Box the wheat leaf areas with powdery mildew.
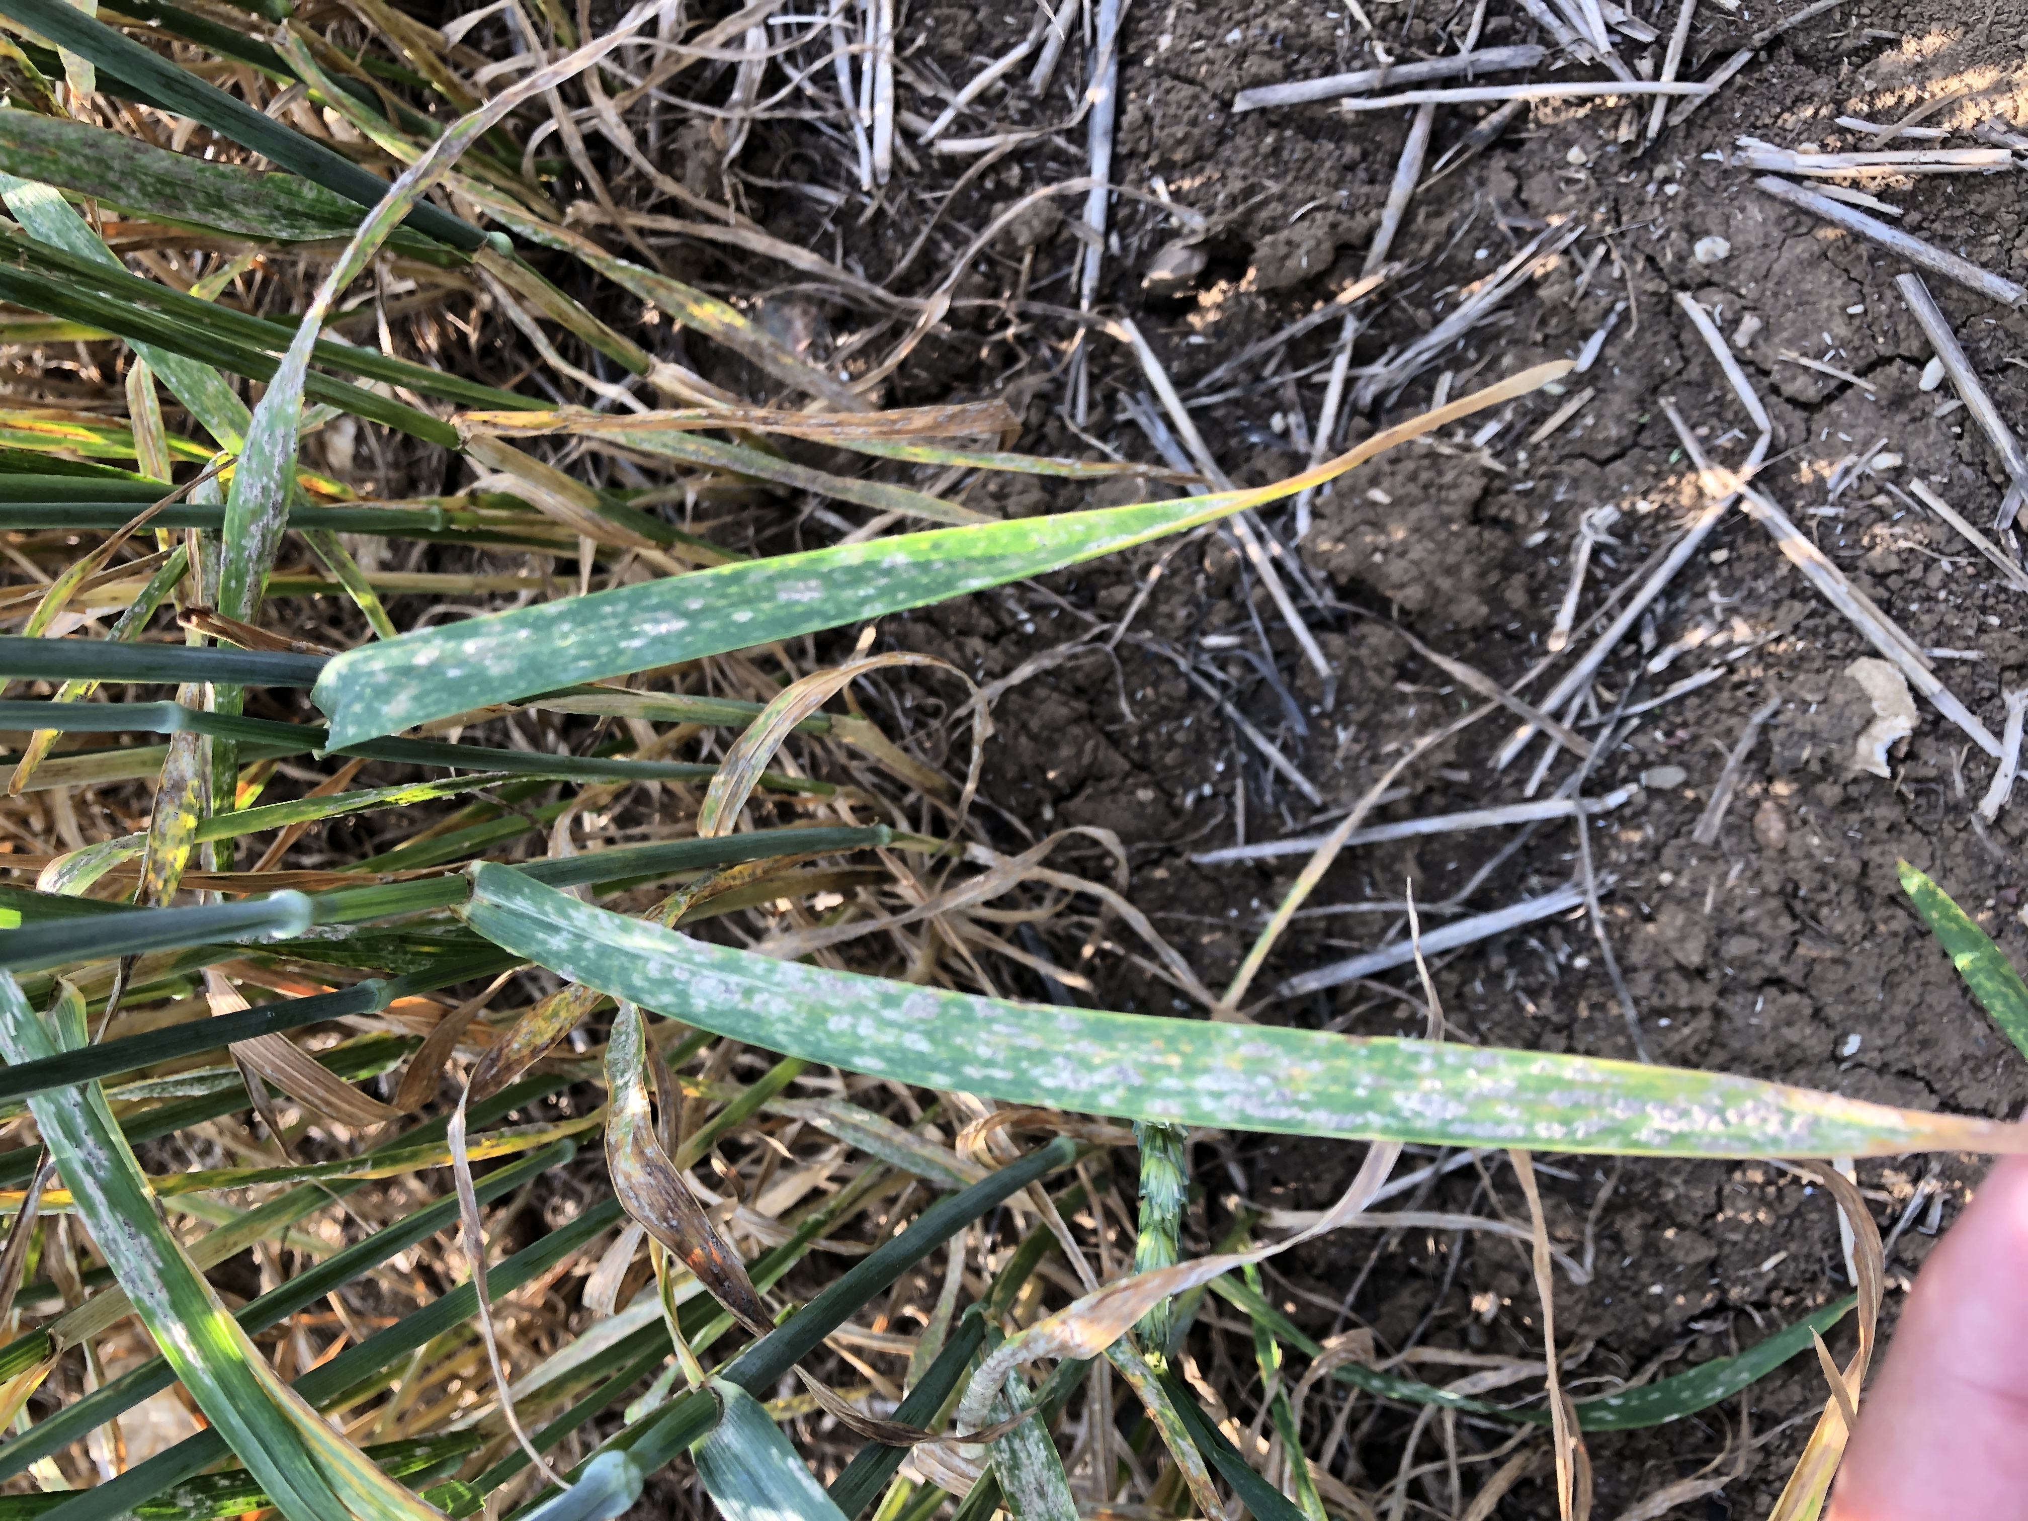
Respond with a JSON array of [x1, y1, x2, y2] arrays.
[[194, 317, 342, 646], [929, 1348, 1111, 1501], [311, 470, 1287, 770], [470, 831, 1996, 1180], [1116, 1088, 1228, 1284], [9, 870, 157, 1359], [1533, 1303, 1772, 1451], [571, 1007, 722, 1306]]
